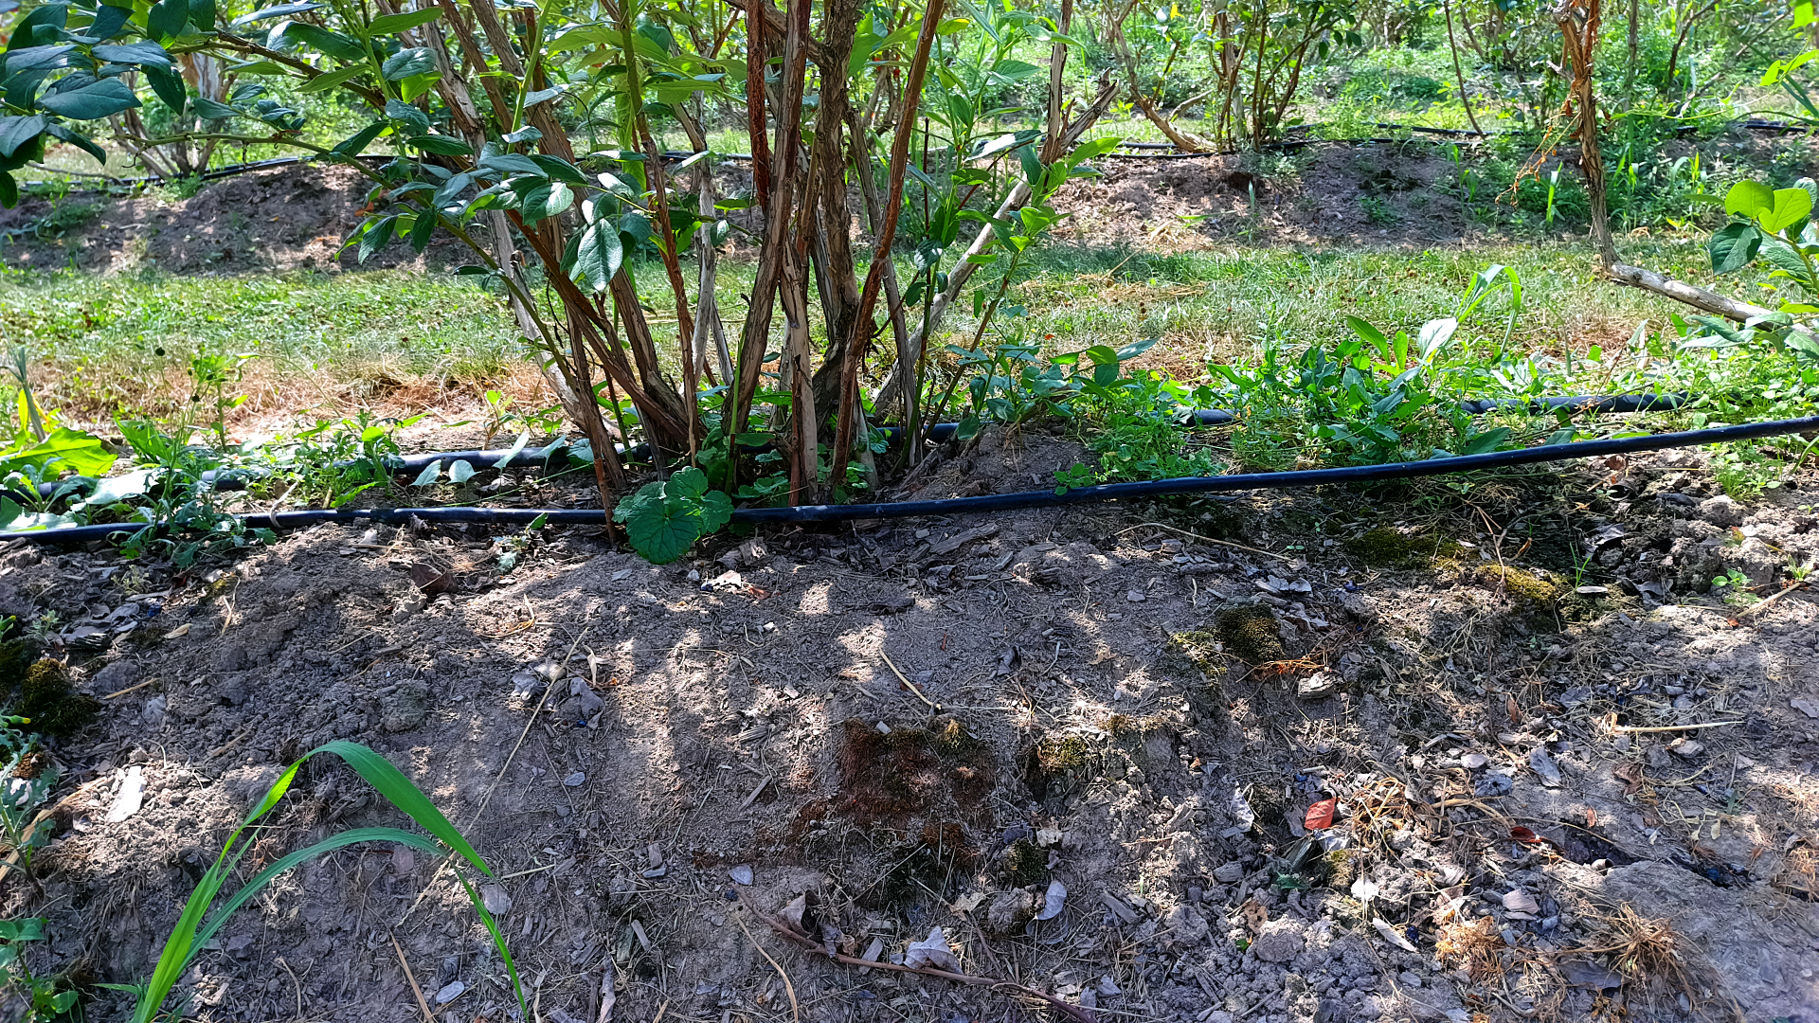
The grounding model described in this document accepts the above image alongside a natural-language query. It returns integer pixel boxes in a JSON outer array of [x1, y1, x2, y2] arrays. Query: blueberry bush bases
[[494, 276, 1035, 601], [105, 116, 259, 228], [1126, 79, 1314, 200]]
